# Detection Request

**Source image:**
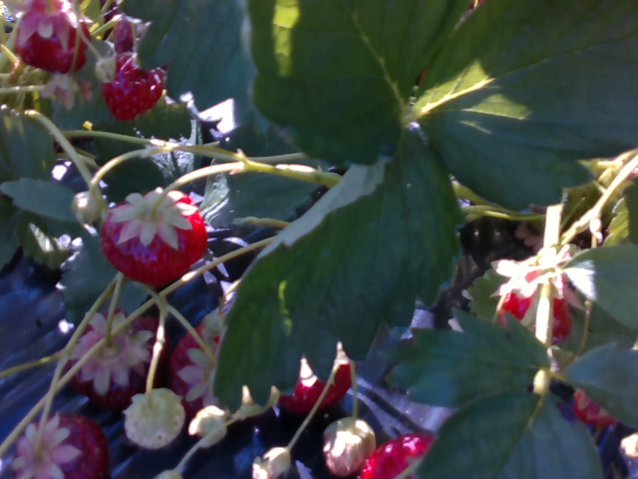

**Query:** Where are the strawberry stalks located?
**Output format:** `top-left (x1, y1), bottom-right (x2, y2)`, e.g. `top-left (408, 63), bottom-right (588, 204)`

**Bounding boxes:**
top-left (96, 284), bottom-right (124, 367)
top-left (137, 340), bottom-right (164, 418)
top-left (30, 373), bottom-right (56, 470)
top-left (133, 168), bottom-right (224, 234)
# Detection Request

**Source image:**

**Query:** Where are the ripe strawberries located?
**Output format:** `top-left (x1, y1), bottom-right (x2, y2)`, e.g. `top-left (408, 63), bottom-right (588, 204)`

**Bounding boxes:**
top-left (64, 319), bottom-right (161, 392)
top-left (104, 195), bottom-right (209, 291)
top-left (570, 373), bottom-right (632, 429)
top-left (106, 47), bottom-right (173, 125)
top-left (366, 436), bottom-right (463, 479)
top-left (14, 412), bottom-right (108, 479)
top-left (161, 319), bottom-right (259, 412)
top-left (499, 266), bottom-right (571, 344)
top-left (18, 4), bottom-right (88, 72)
top-left (272, 338), bottom-right (364, 413)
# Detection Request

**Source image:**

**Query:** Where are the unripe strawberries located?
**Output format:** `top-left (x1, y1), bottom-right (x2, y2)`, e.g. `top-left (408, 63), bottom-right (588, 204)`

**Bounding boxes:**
top-left (124, 391), bottom-right (187, 445)
top-left (328, 422), bottom-right (381, 470)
